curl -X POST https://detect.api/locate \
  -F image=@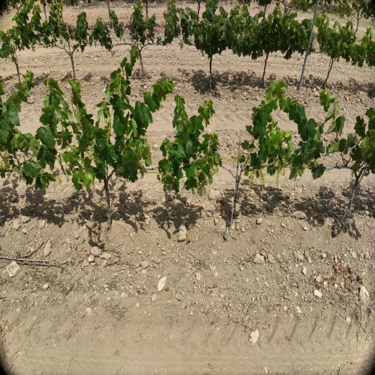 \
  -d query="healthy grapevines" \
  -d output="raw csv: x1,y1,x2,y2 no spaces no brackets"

308,86,375,239
185,80,312,247
42,58,184,240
